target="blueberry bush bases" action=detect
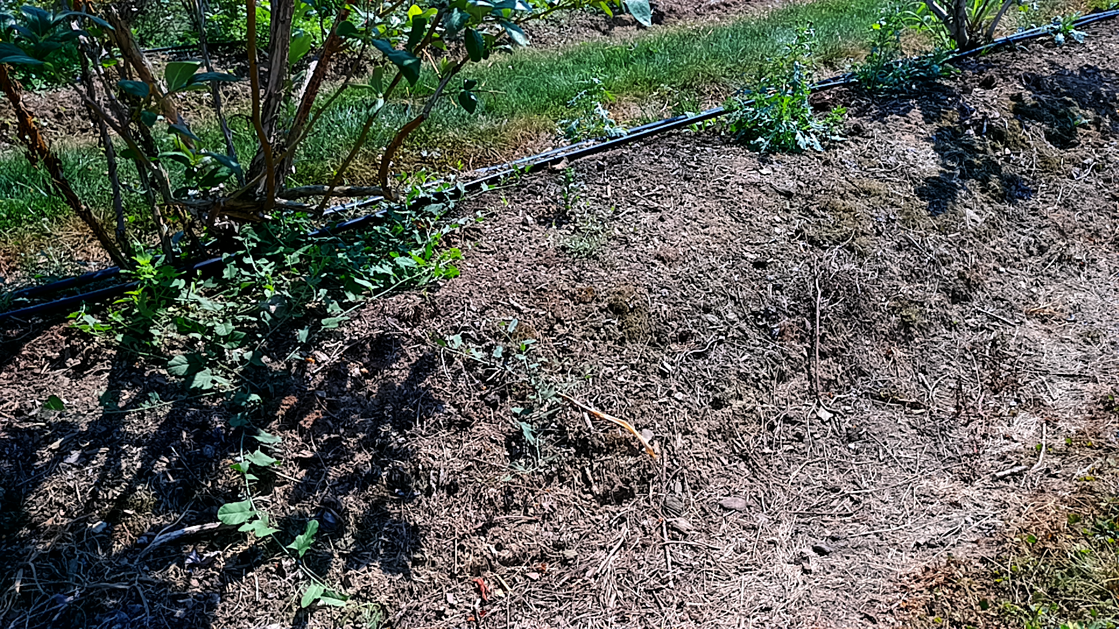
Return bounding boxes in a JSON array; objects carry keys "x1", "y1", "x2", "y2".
[
  {"x1": 907, "y1": 2, "x2": 1021, "y2": 67},
  {"x1": 45, "y1": 110, "x2": 365, "y2": 312}
]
